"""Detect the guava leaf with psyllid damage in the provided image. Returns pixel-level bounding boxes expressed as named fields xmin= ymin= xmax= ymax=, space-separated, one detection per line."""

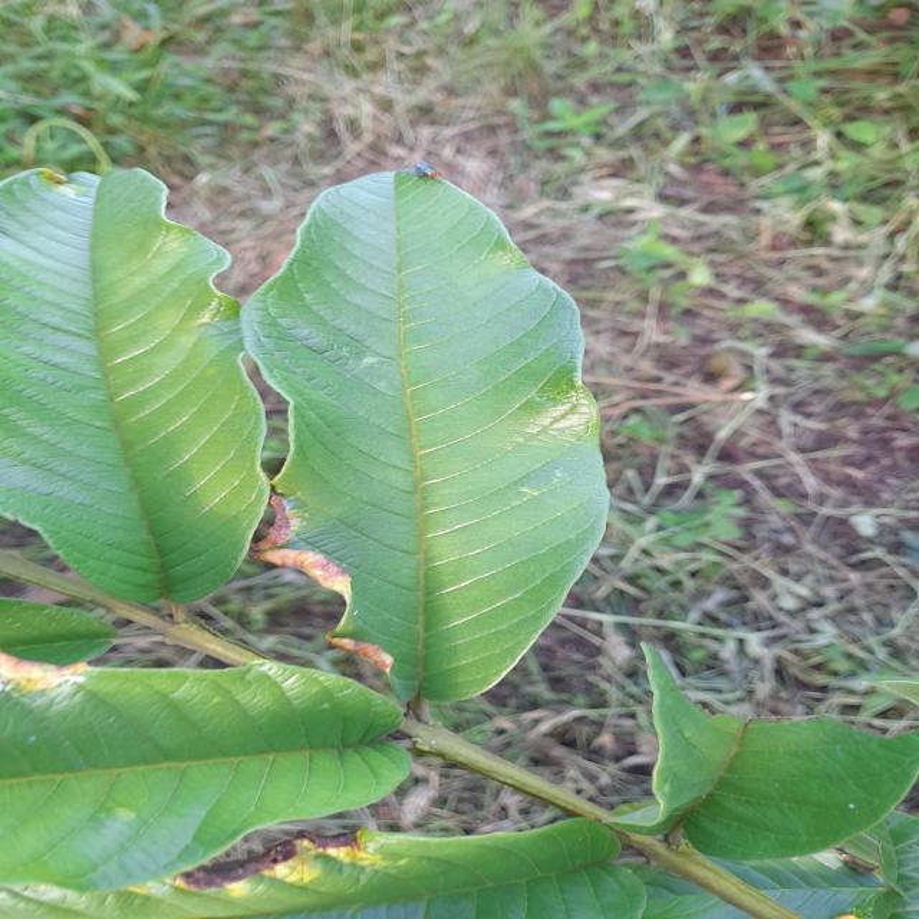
xmin=228 ymin=171 xmax=627 ymax=706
